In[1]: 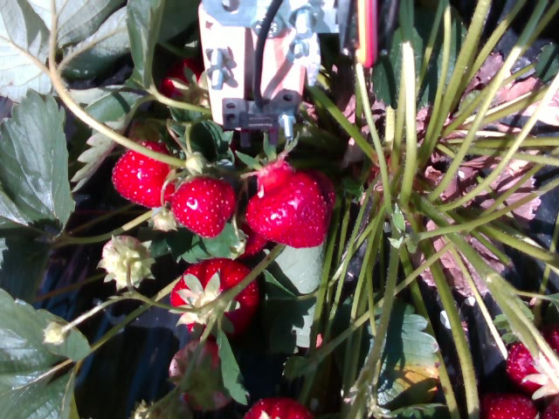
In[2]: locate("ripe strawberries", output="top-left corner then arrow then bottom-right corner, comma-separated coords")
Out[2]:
175,260 -> 257,336
507,335 -> 559,392
484,395 -> 538,419
173,173 -> 240,232
244,395 -> 309,419
113,138 -> 167,203
254,162 -> 332,244
156,333 -> 233,411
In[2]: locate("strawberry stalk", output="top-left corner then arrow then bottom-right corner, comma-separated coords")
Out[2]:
203,289 -> 256,316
